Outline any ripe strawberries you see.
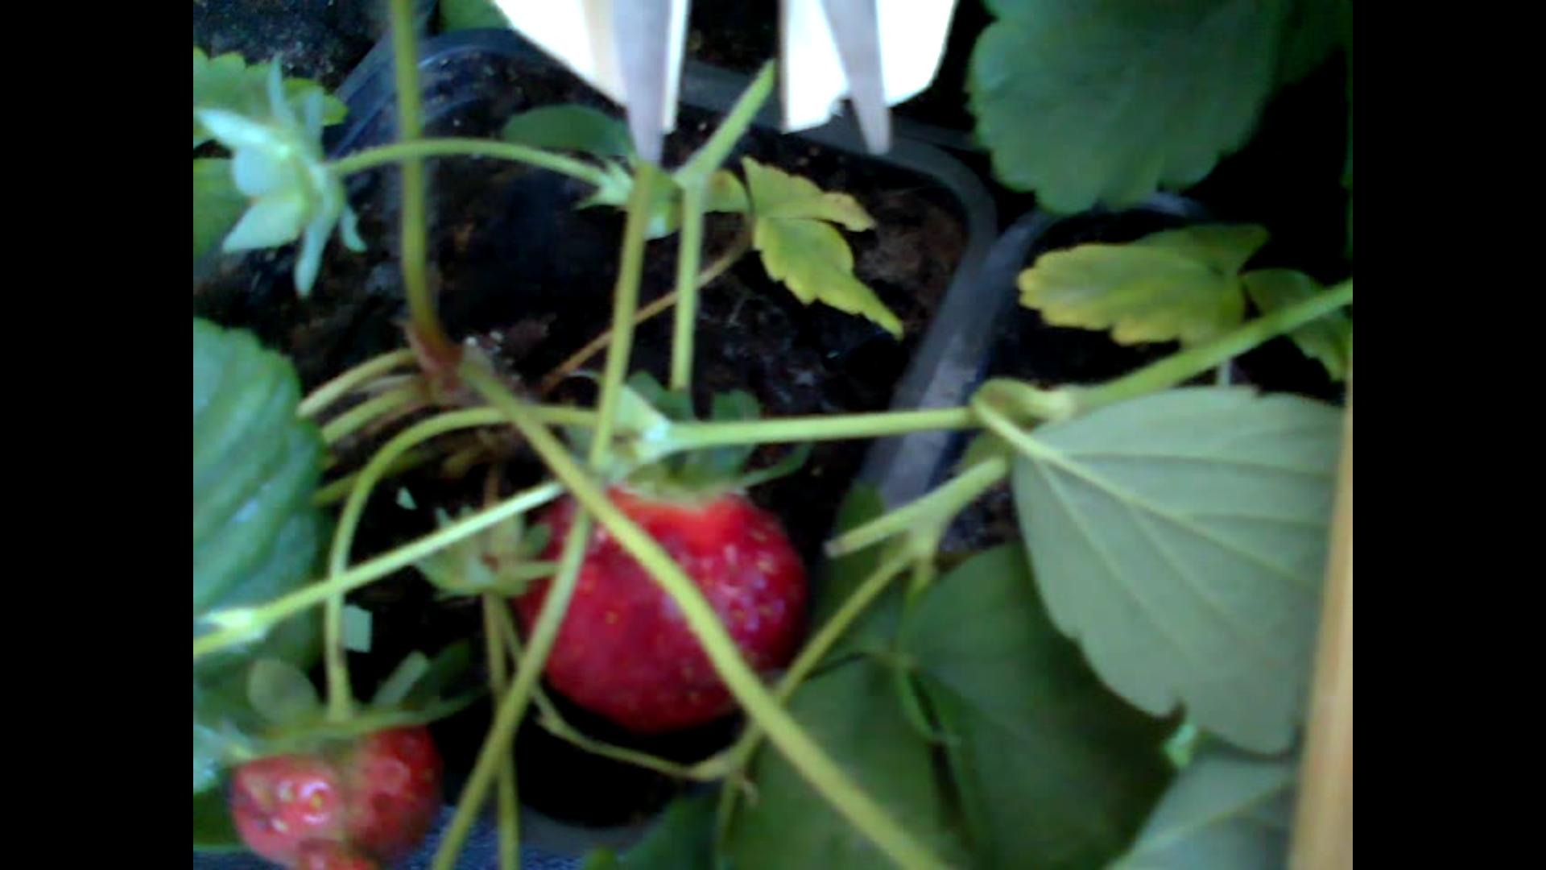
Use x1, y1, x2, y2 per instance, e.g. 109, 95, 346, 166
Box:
520, 454, 829, 760
219, 662, 475, 870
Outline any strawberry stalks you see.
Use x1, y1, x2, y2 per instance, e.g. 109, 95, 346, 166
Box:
295, 125, 465, 182
321, 411, 395, 791
630, 171, 726, 517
